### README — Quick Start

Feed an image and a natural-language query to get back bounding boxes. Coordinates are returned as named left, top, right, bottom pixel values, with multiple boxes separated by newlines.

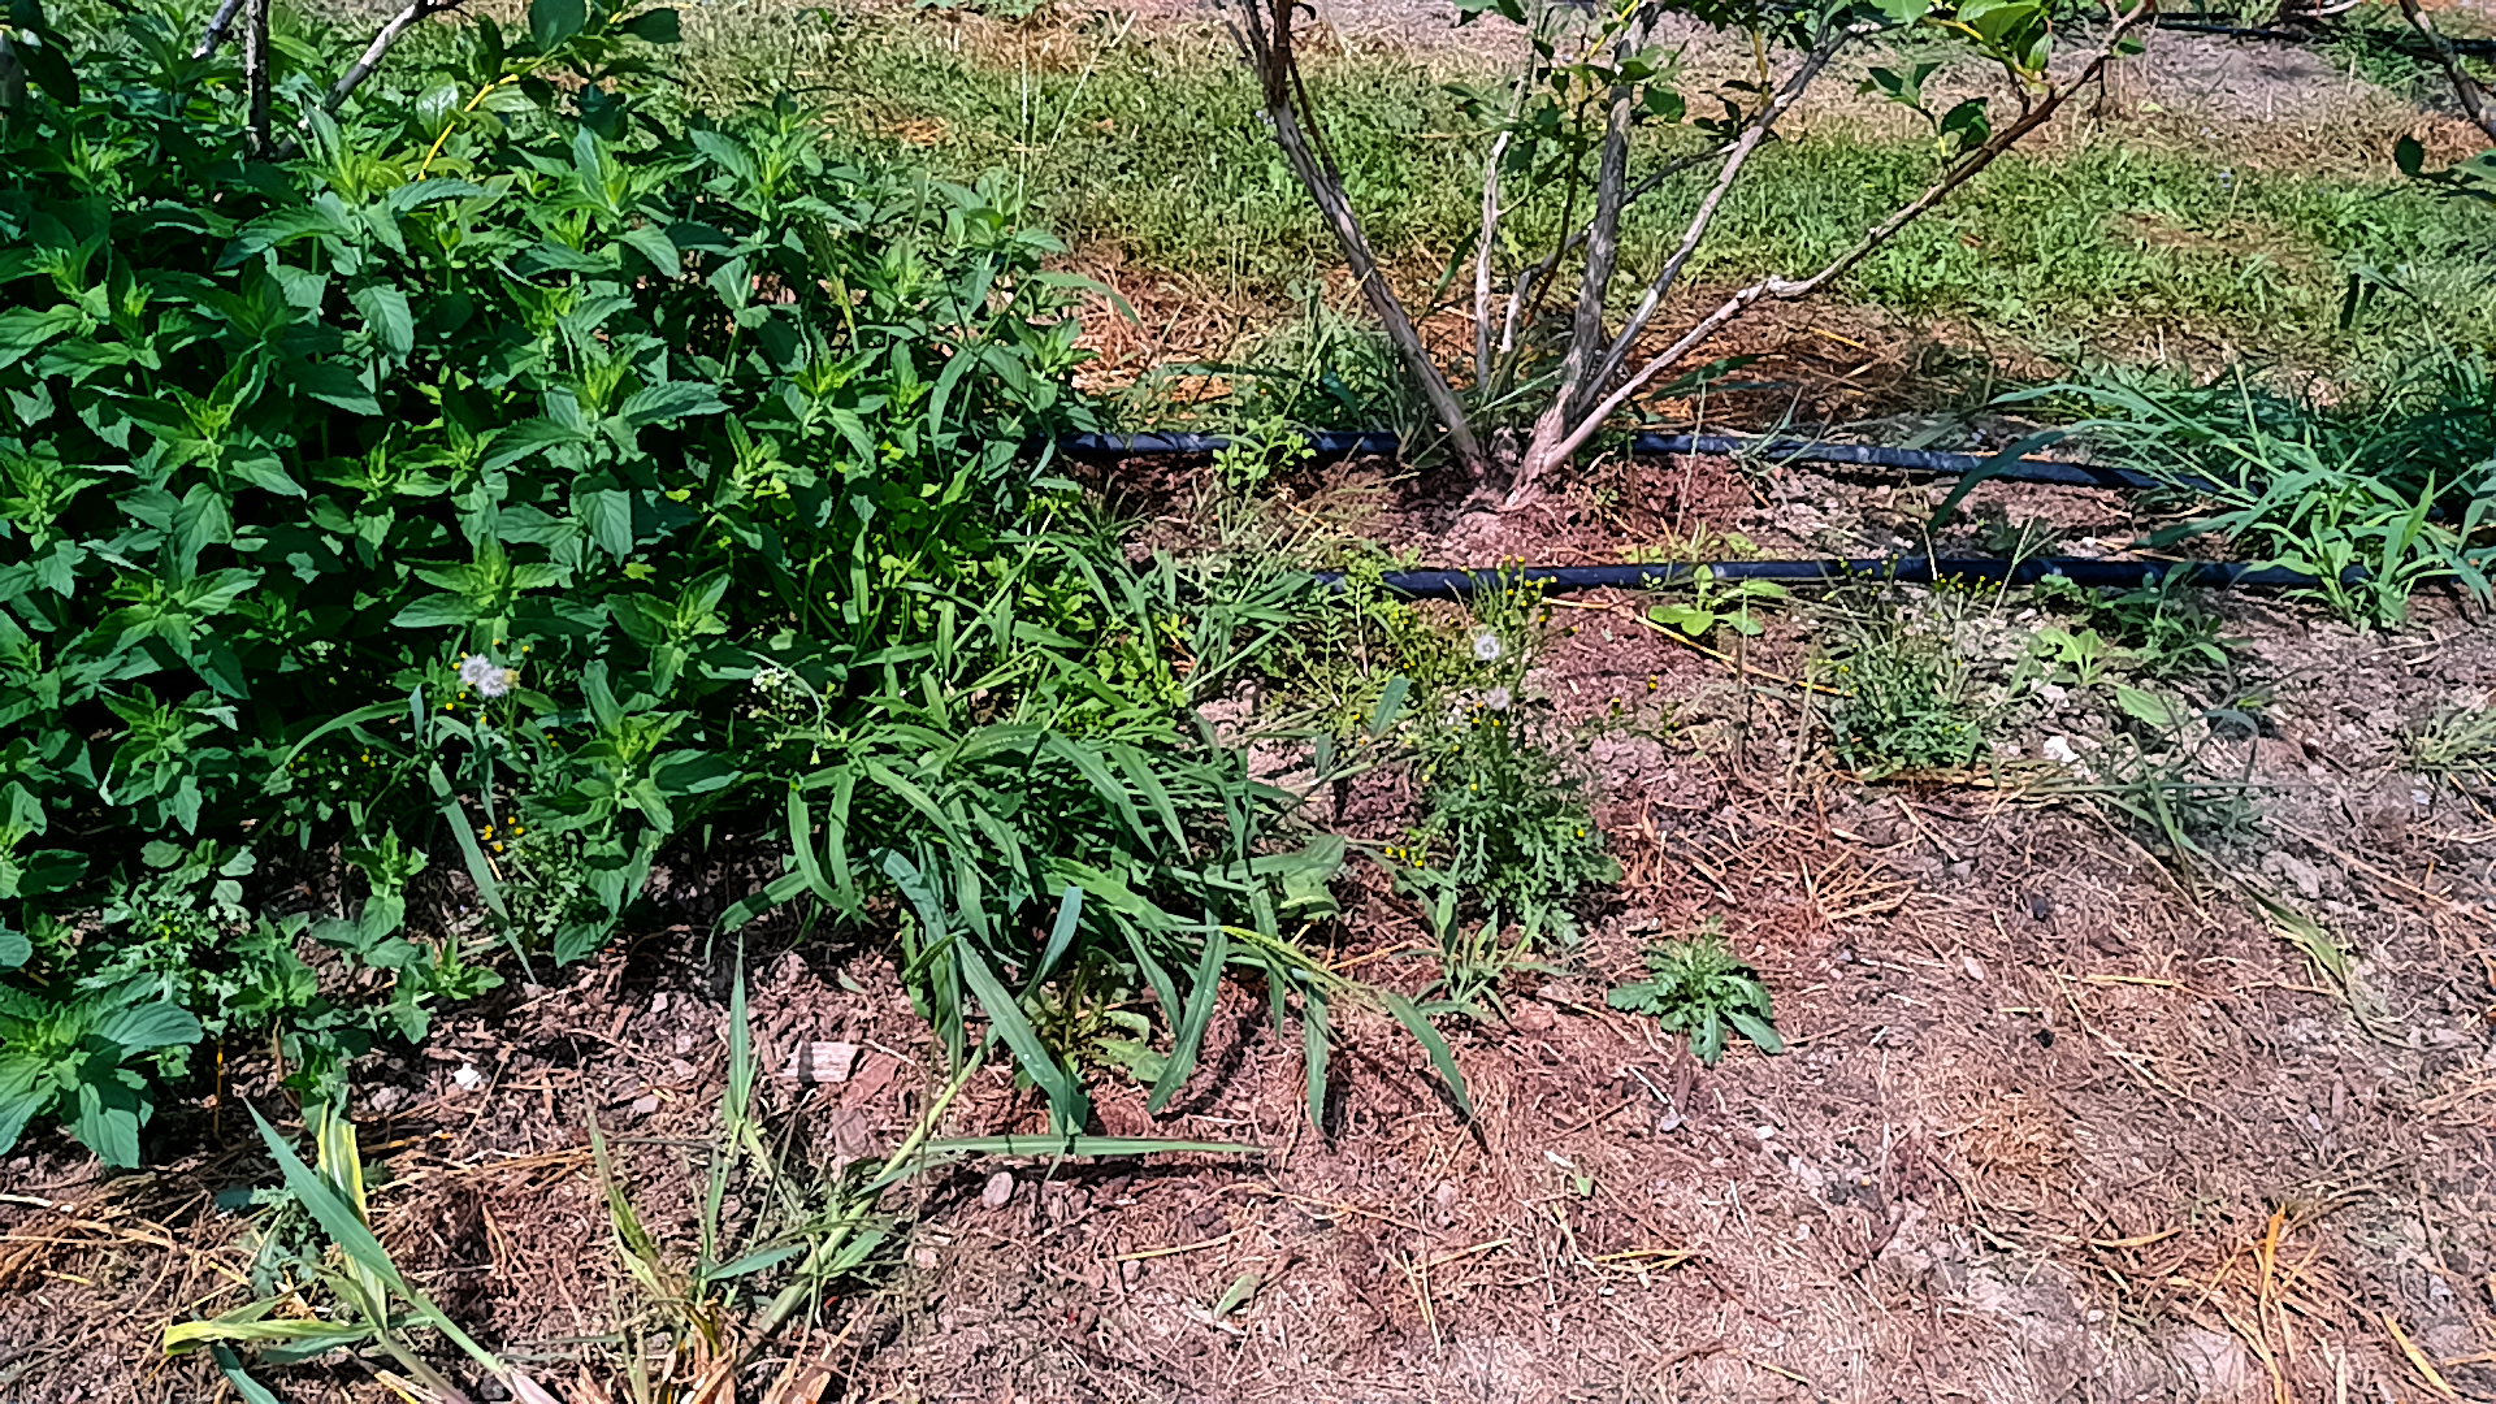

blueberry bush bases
left=8, top=0, right=428, bottom=559
left=1296, top=233, right=1772, bottom=582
